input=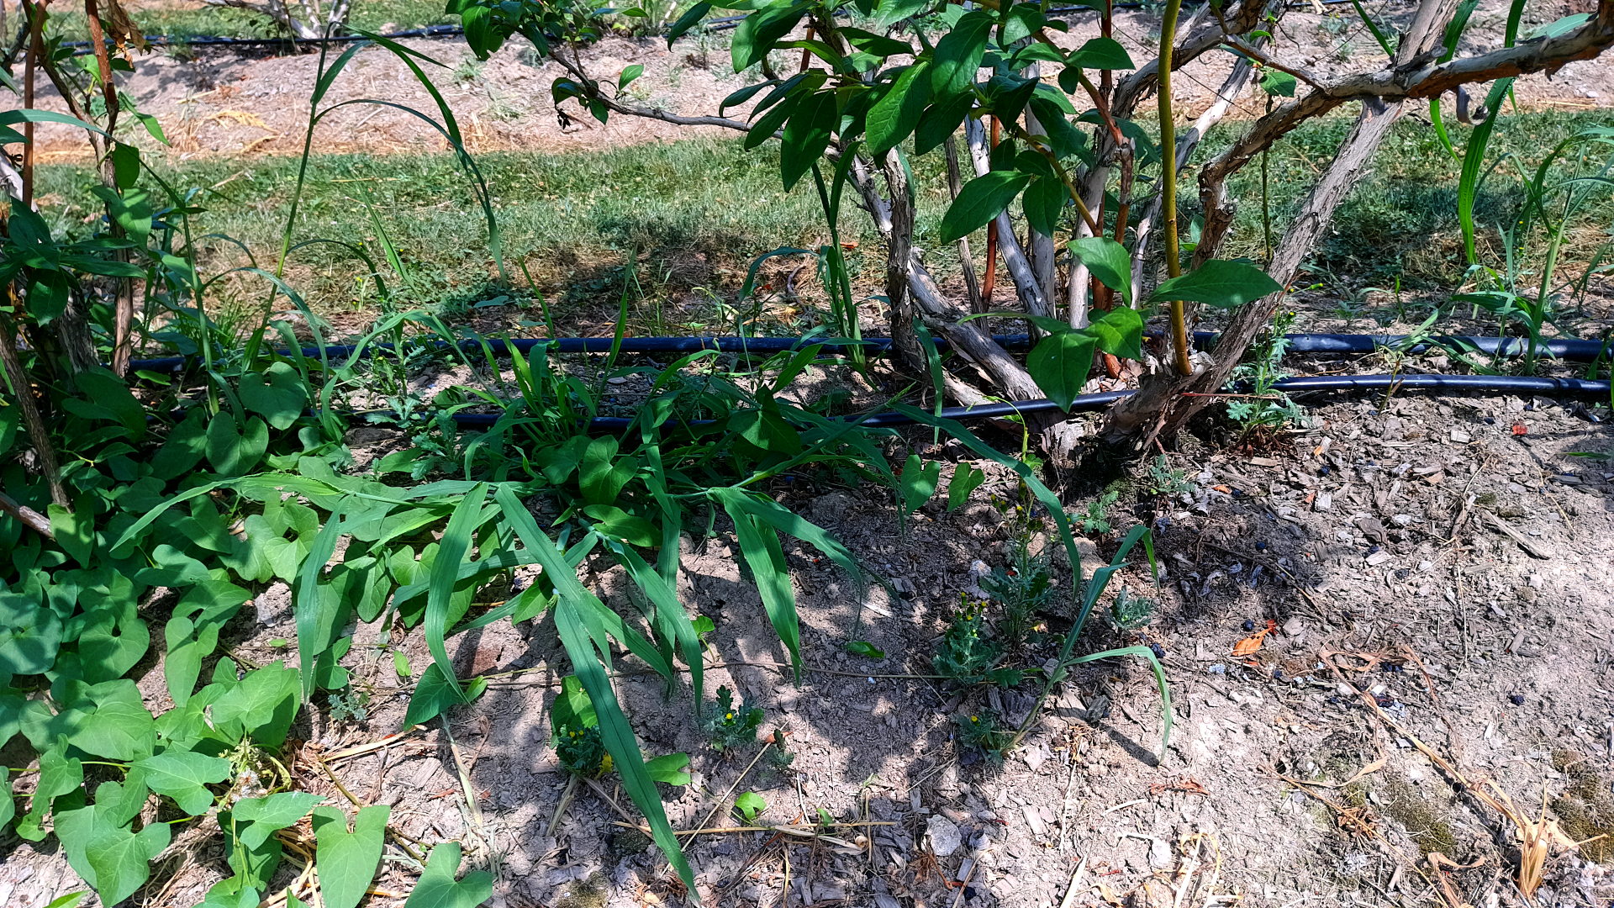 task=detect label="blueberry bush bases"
[881,187,1295,539]
[230,8,372,61]
[0,224,212,617]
